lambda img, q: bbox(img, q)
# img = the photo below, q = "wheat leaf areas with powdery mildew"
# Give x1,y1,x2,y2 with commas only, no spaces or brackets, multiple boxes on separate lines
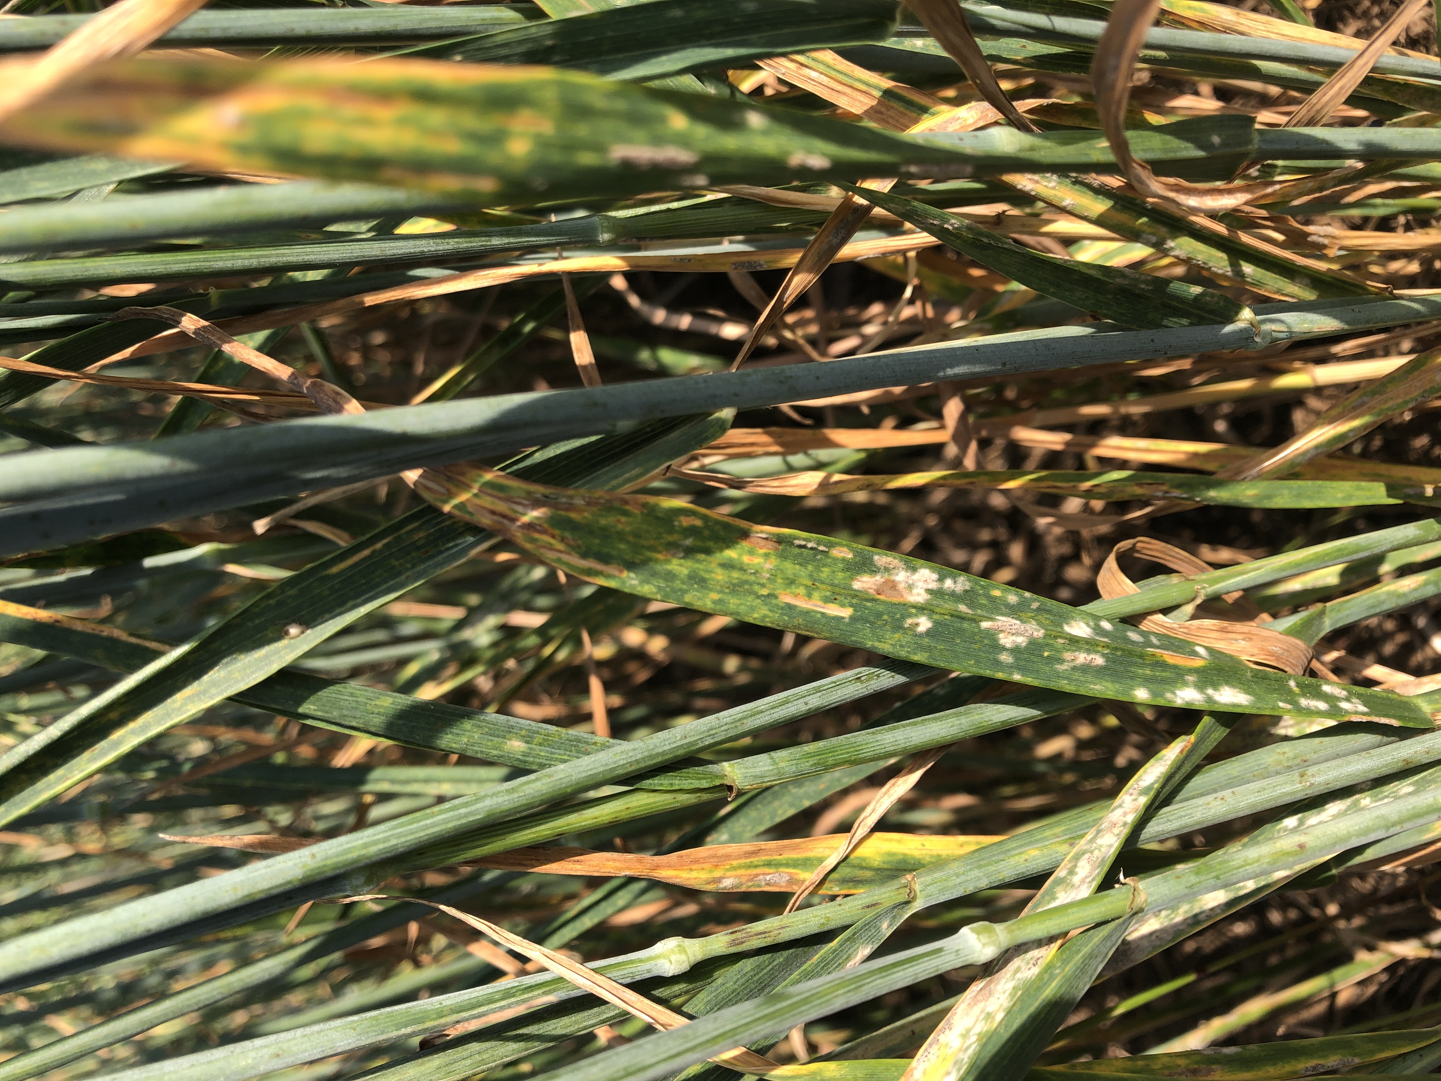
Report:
906,717,1200,1079
479,714,543,757
450,458,1383,731
1120,753,1441,970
